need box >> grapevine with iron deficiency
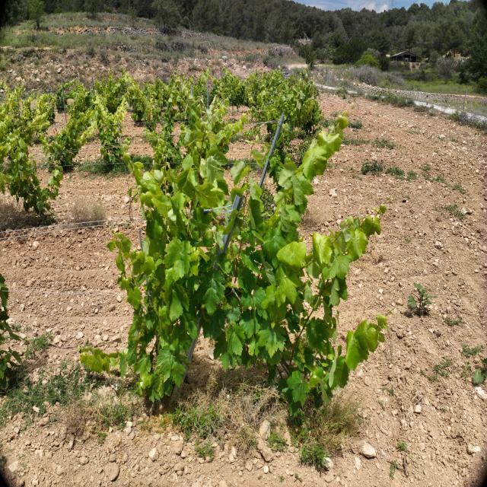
[76,97,393,431]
